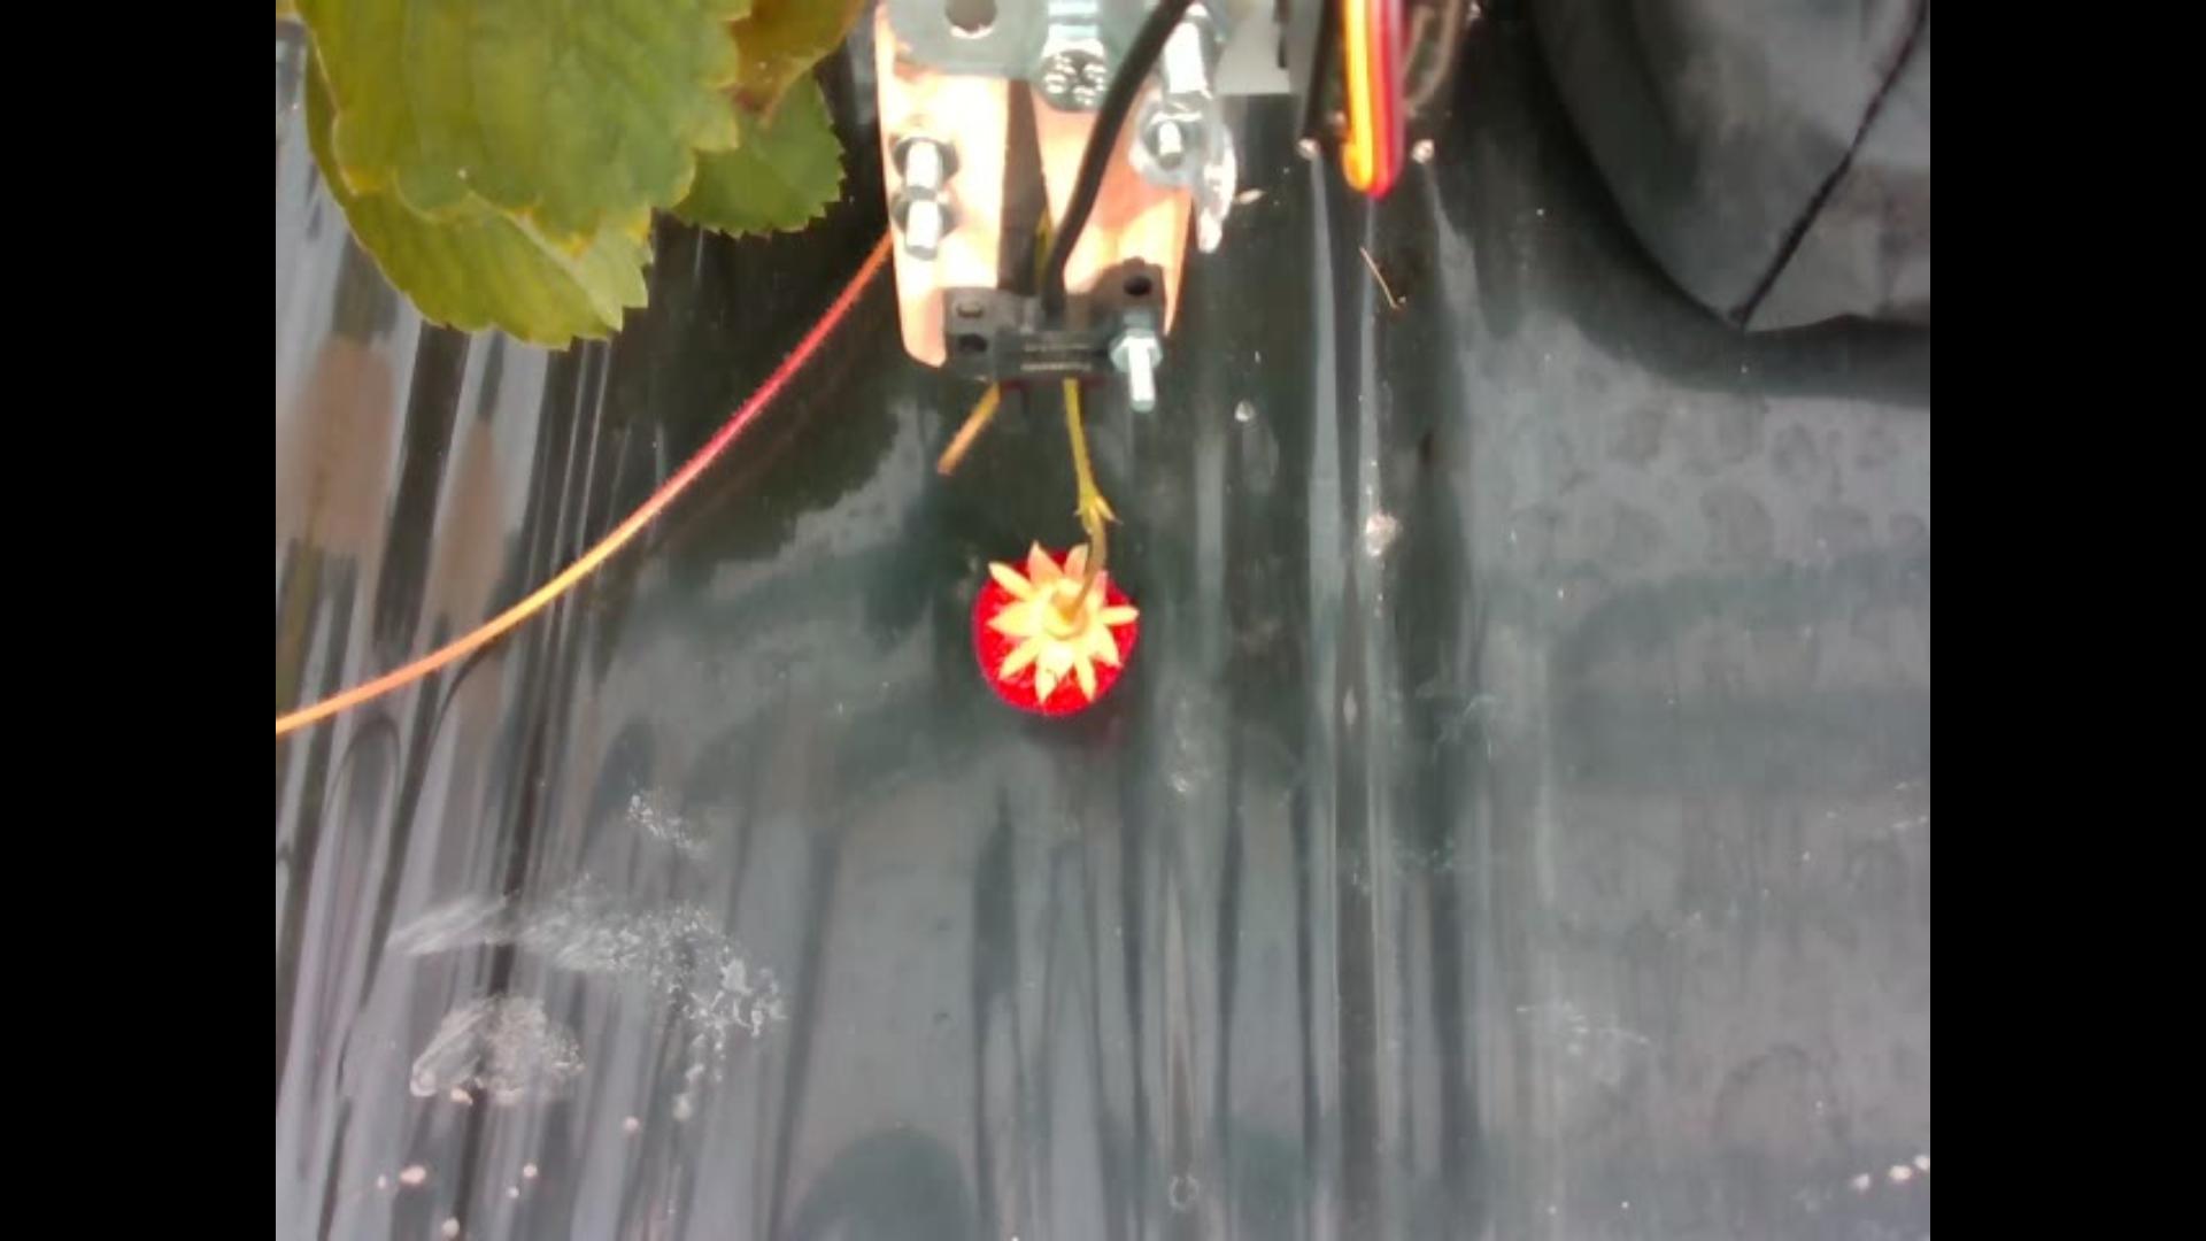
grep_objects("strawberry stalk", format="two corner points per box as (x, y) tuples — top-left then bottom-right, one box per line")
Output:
(1051, 400), (1113, 645)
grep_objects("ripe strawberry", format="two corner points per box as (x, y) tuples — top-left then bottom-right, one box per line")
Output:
(958, 534), (1164, 724)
